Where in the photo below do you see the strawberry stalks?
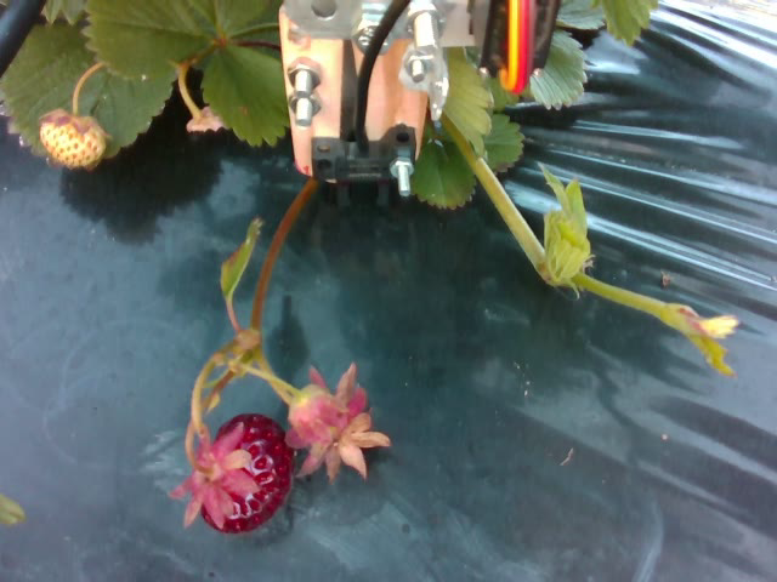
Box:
[74,64,102,129]
[191,353,229,483]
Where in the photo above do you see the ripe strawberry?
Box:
[194,417,293,532]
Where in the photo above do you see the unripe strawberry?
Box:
[44,112,109,166]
